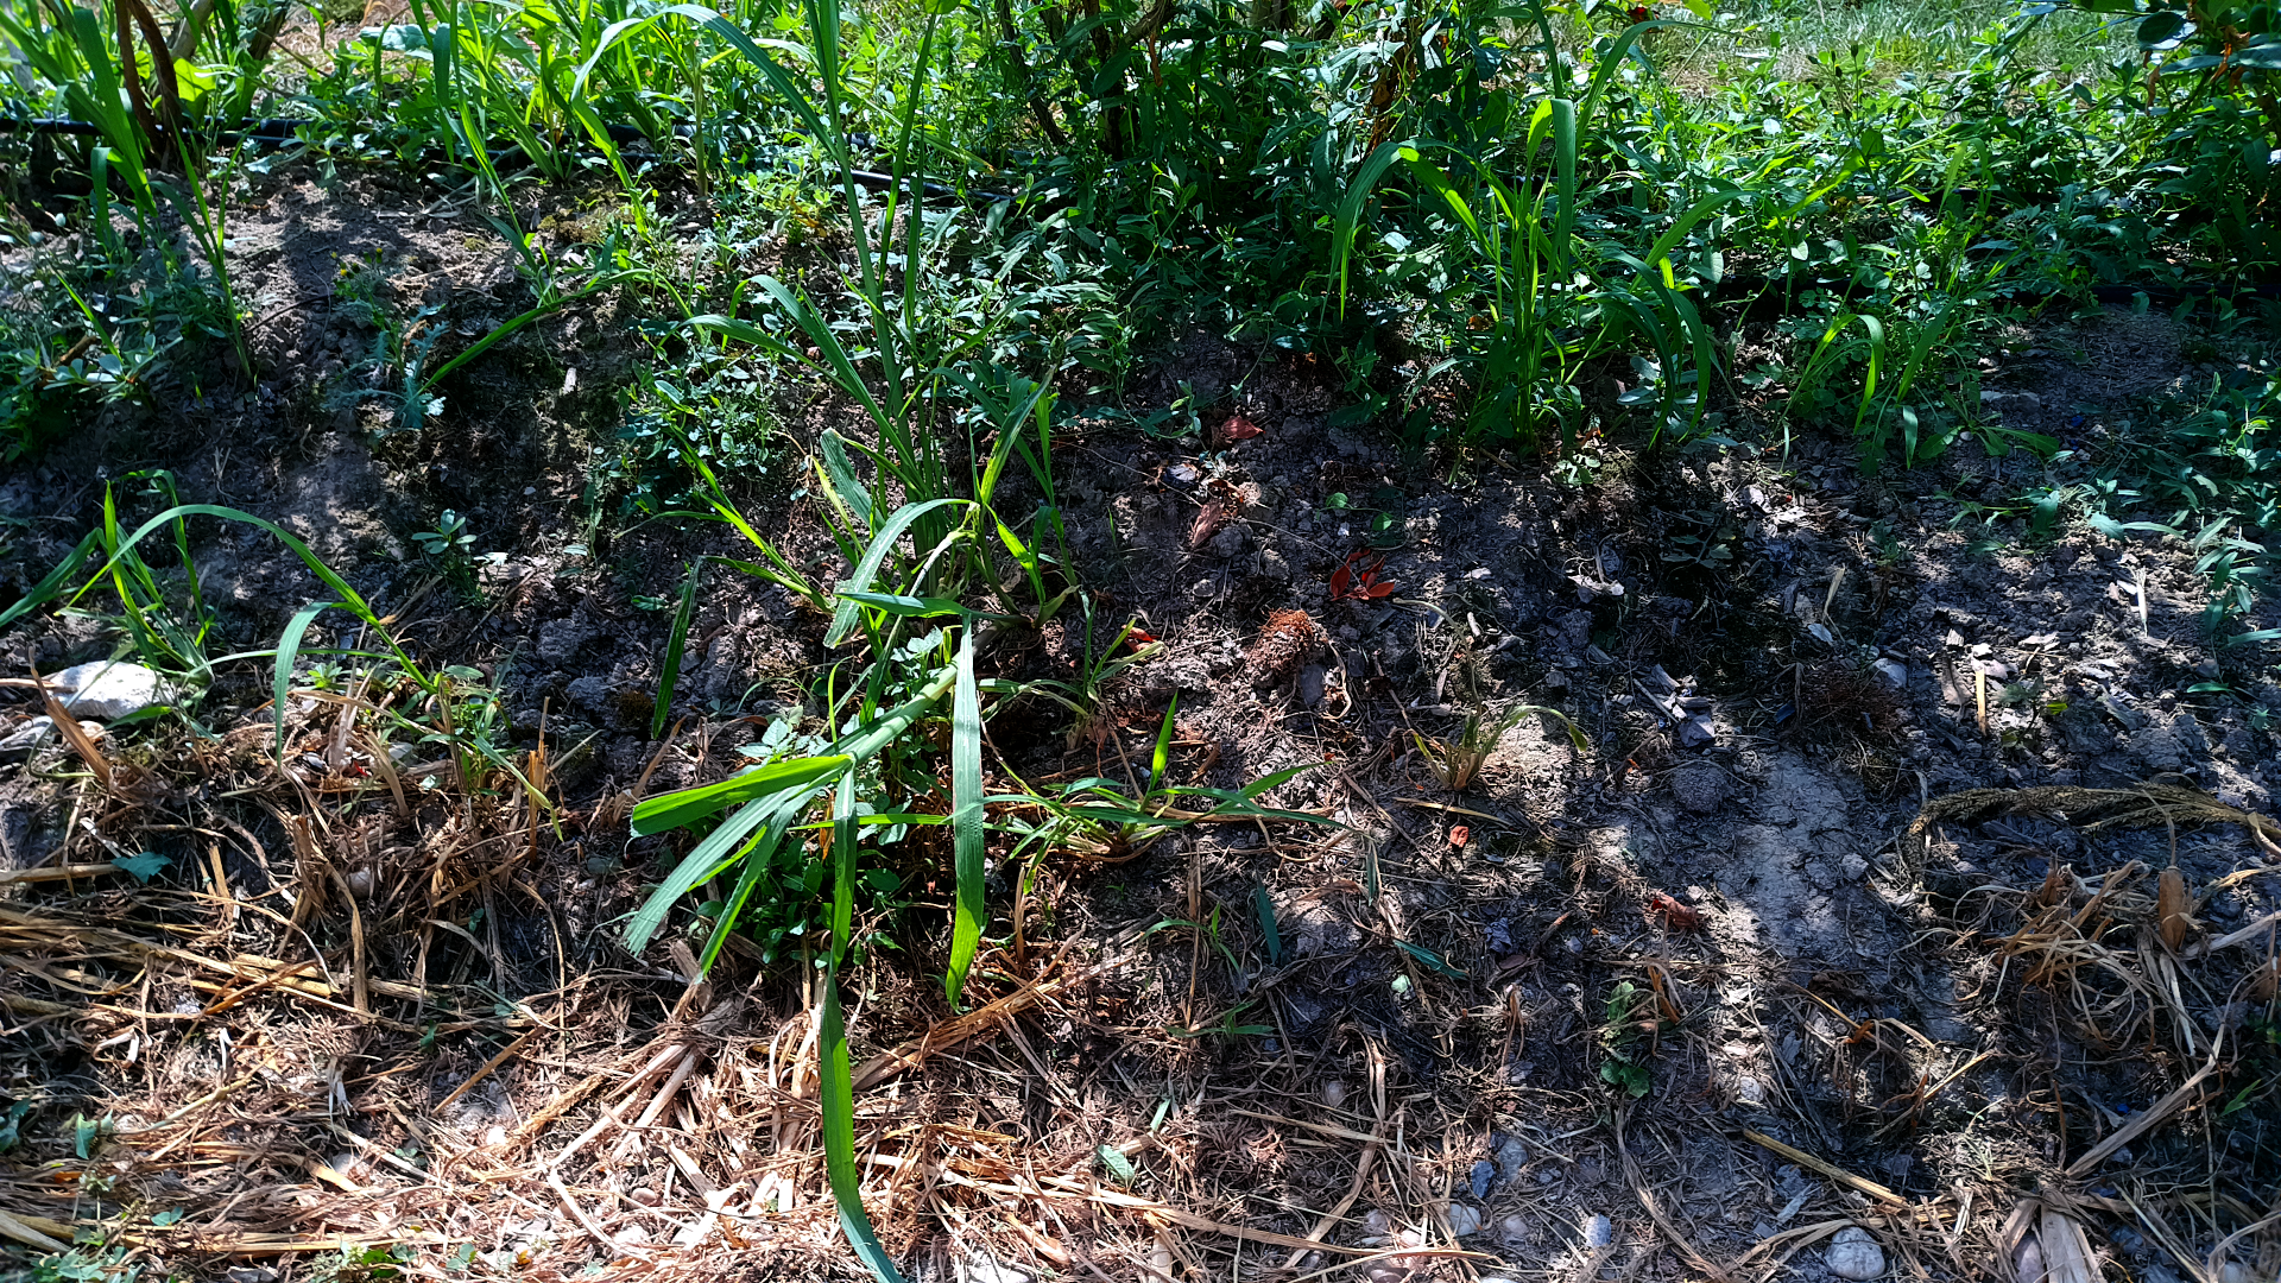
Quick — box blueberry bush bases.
[971,23,1452,333]
[10,2,243,224]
